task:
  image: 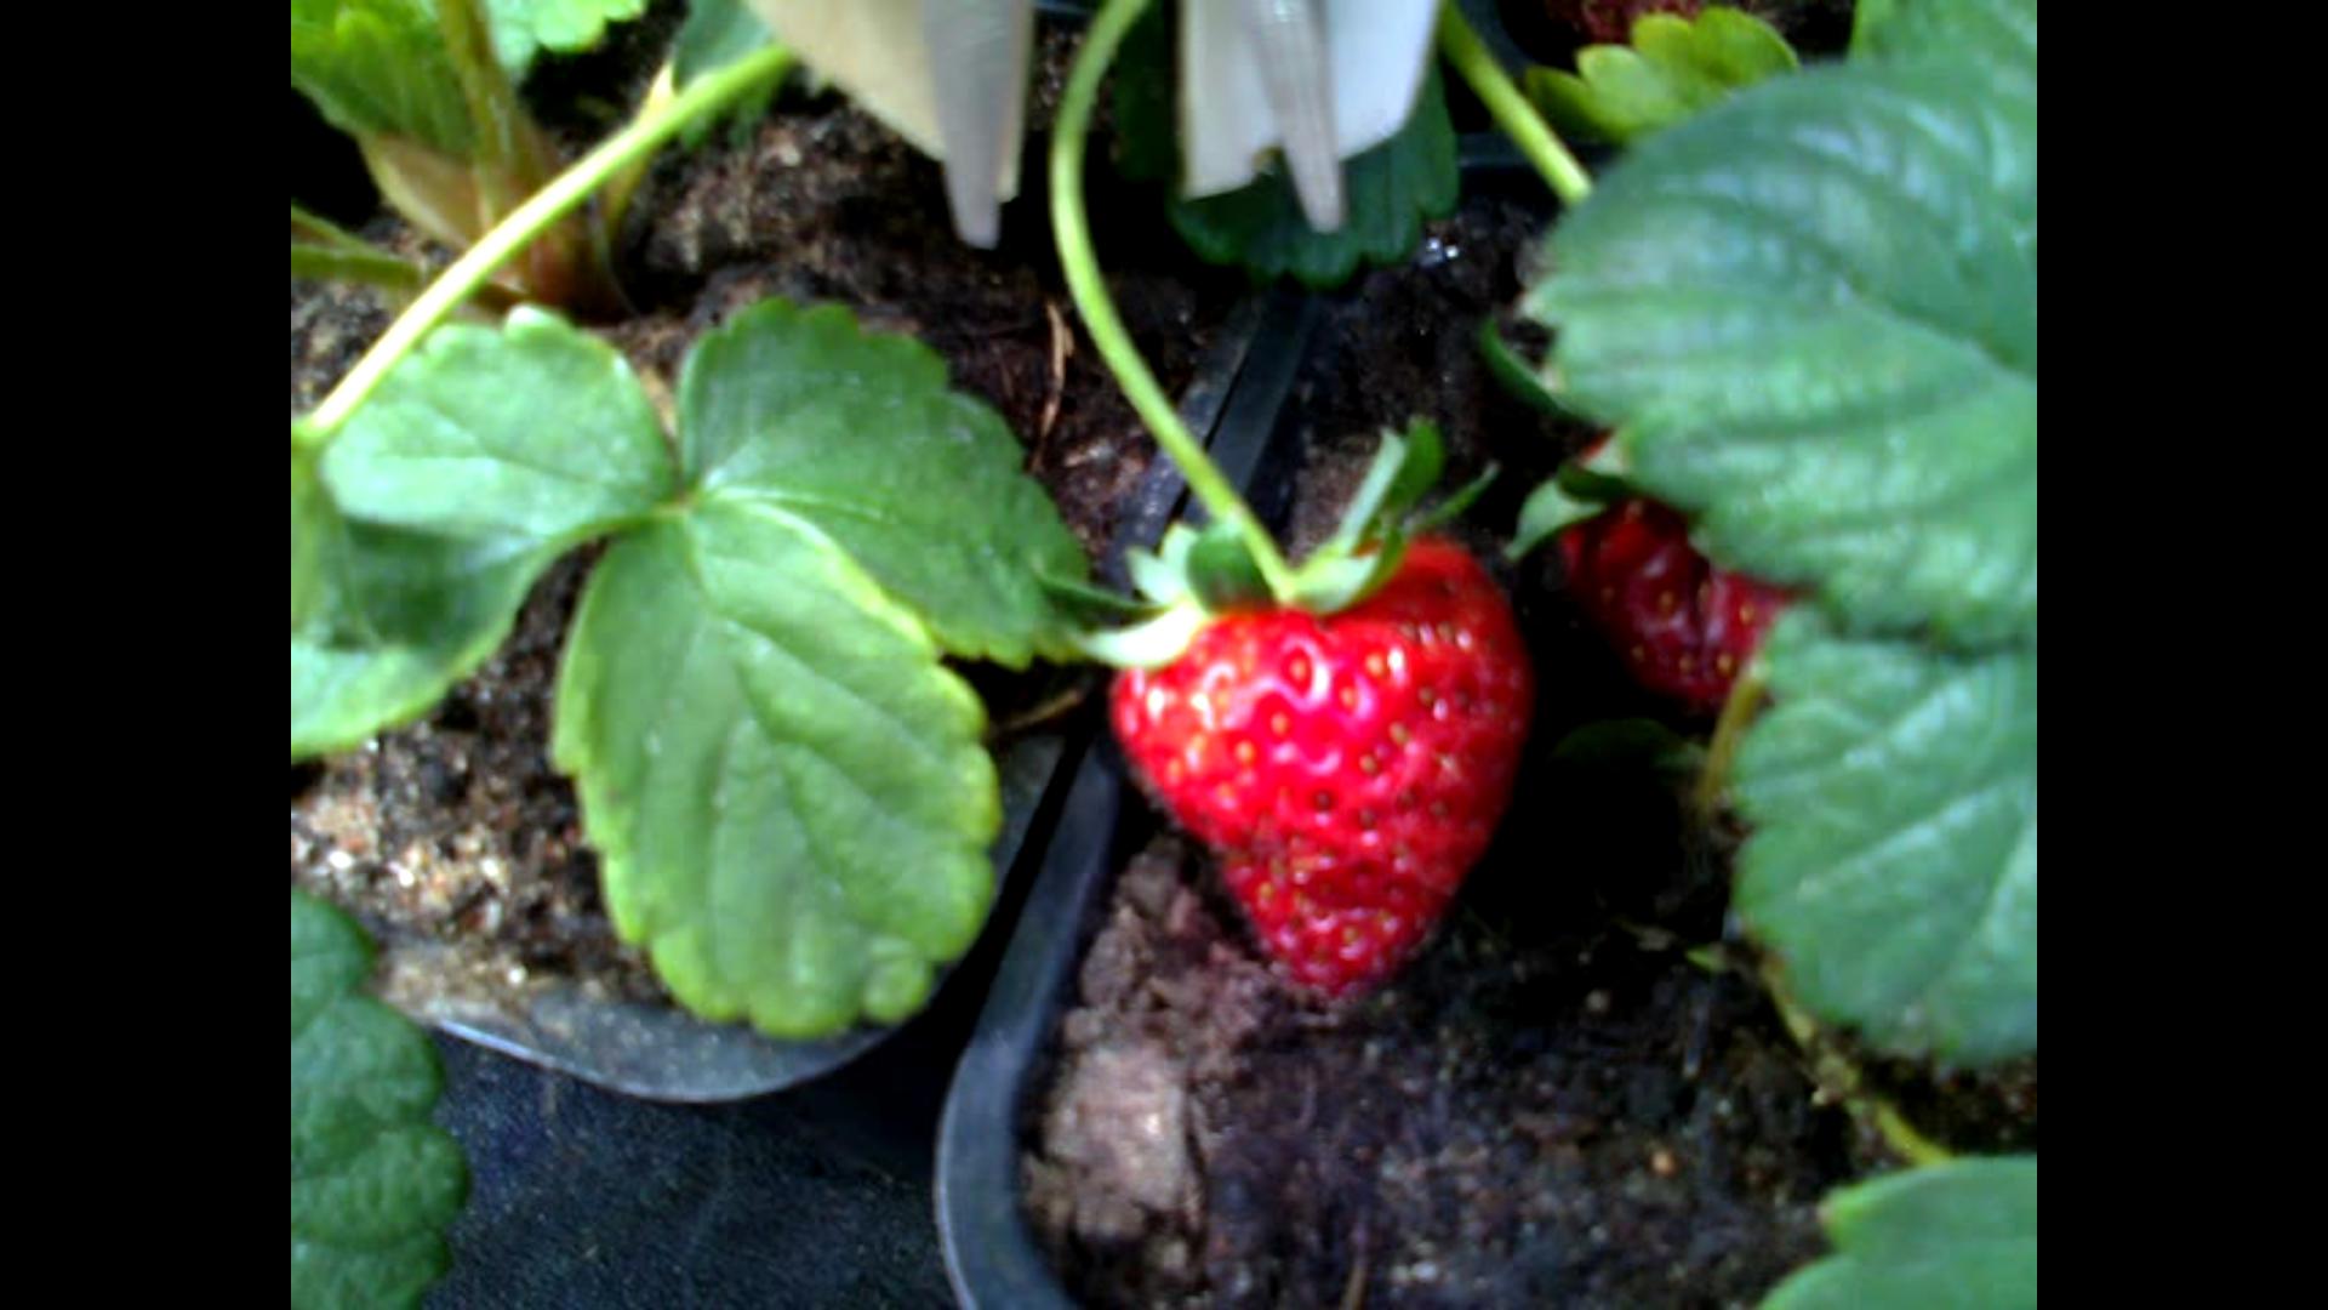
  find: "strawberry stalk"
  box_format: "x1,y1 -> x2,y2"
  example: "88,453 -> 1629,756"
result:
1048,8 -> 1308,633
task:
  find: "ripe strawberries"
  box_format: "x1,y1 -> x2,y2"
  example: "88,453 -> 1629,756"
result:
1539,412 -> 1857,747
1075,463 -> 1534,1005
